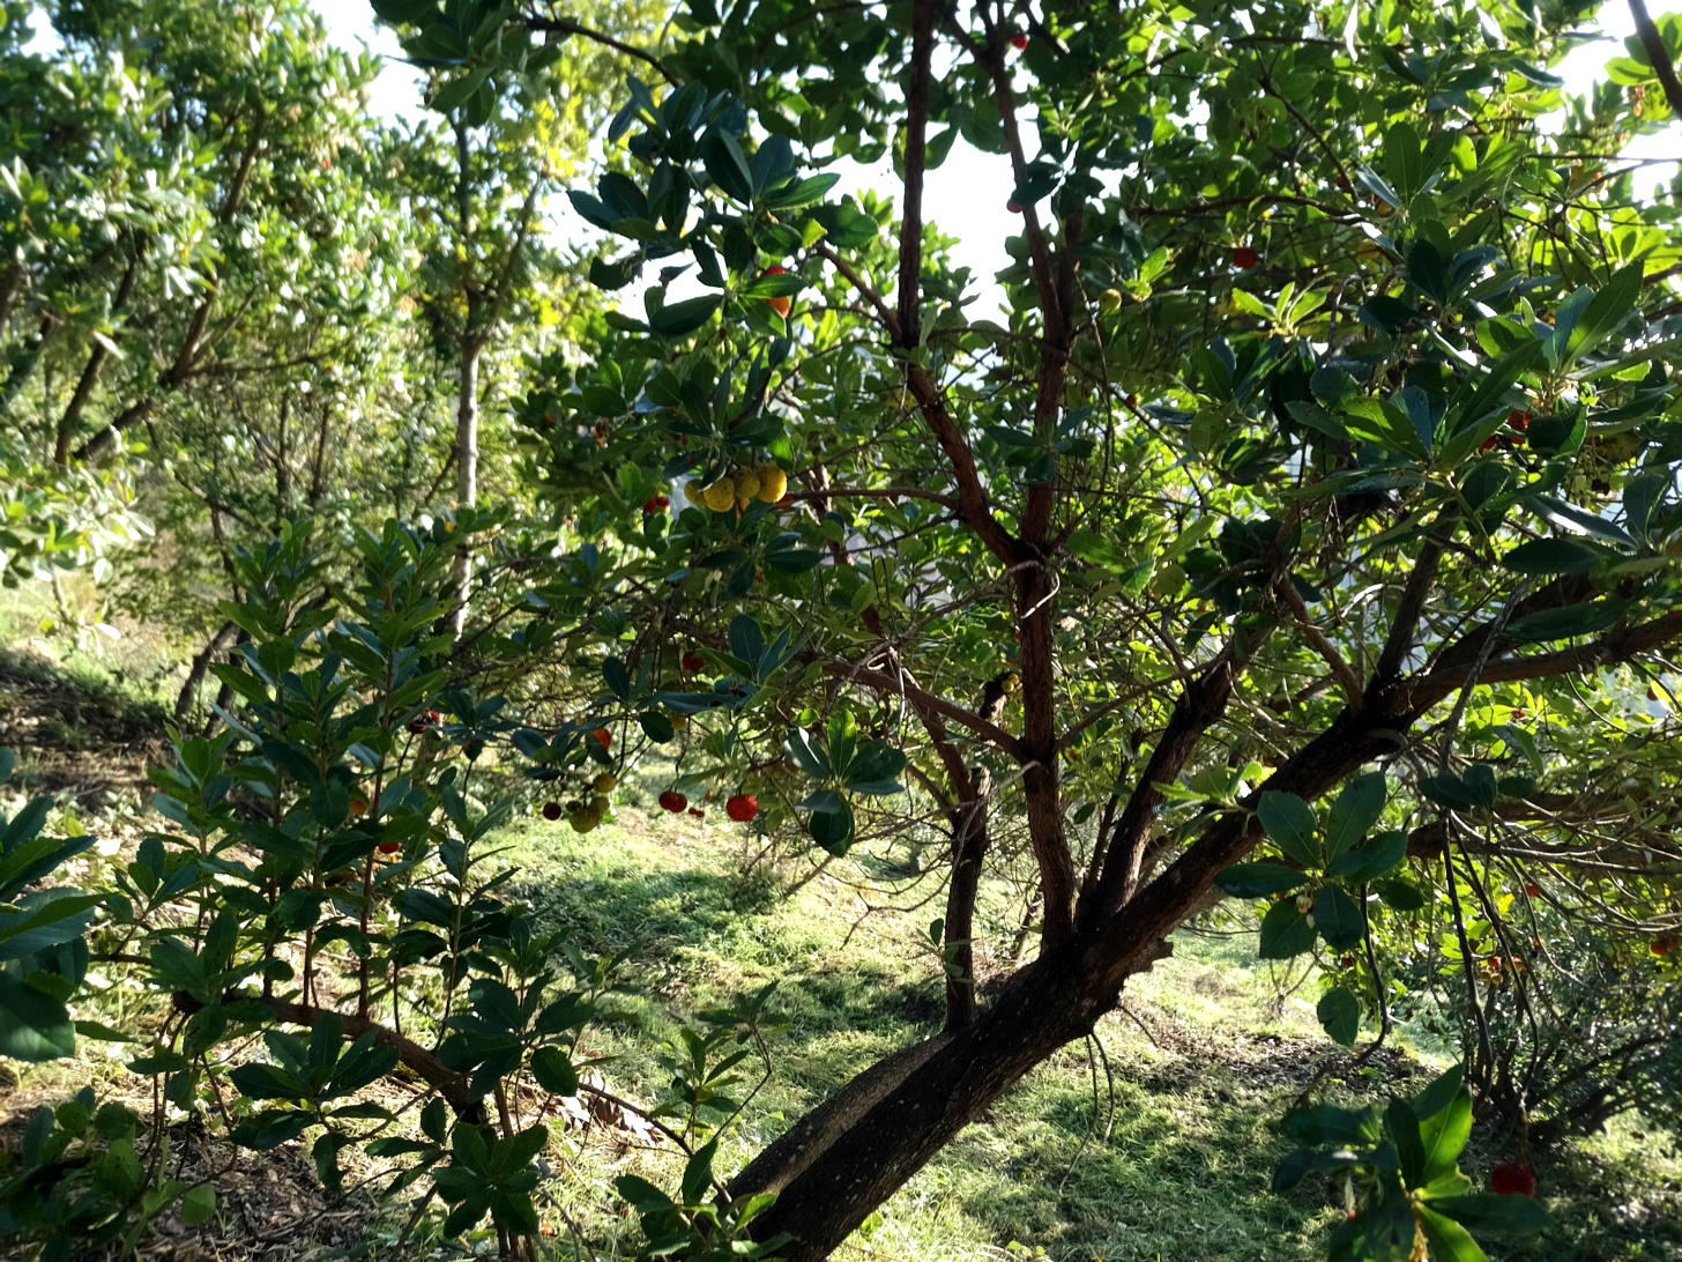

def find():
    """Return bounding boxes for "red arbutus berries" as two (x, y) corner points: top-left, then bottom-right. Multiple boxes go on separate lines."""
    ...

(669, 794), (687, 813)
(1507, 410), (1536, 446)
(544, 803), (562, 820)
(1651, 936), (1668, 954)
(1234, 248), (1257, 268)
(769, 295), (790, 316)
(644, 495), (671, 516)
(1524, 883), (1541, 897)
(591, 728), (613, 749)
(659, 791), (676, 809)
(1493, 1161), (1536, 1200)
(683, 652), (703, 671)
(765, 264), (789, 278)
(727, 794), (758, 822)
(379, 840), (399, 854)
(1488, 956), (1502, 970)
(689, 807), (696, 815)
(1010, 34), (1029, 49)
(697, 811), (704, 817)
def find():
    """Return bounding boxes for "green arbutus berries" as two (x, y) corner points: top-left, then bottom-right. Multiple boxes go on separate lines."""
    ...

(595, 772), (616, 792)
(570, 805), (598, 833)
(1357, 238), (1380, 260)
(1489, 973), (1502, 985)
(1480, 971), (1490, 981)
(1097, 288), (1122, 310)
(592, 796), (610, 814)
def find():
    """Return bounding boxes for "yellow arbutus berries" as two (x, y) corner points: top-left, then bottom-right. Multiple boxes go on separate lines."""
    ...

(755, 467), (788, 503)
(1506, 957), (1523, 973)
(1002, 680), (1015, 693)
(733, 468), (761, 495)
(347, 796), (366, 814)
(1008, 673), (1020, 685)
(684, 479), (707, 502)
(705, 474), (735, 506)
